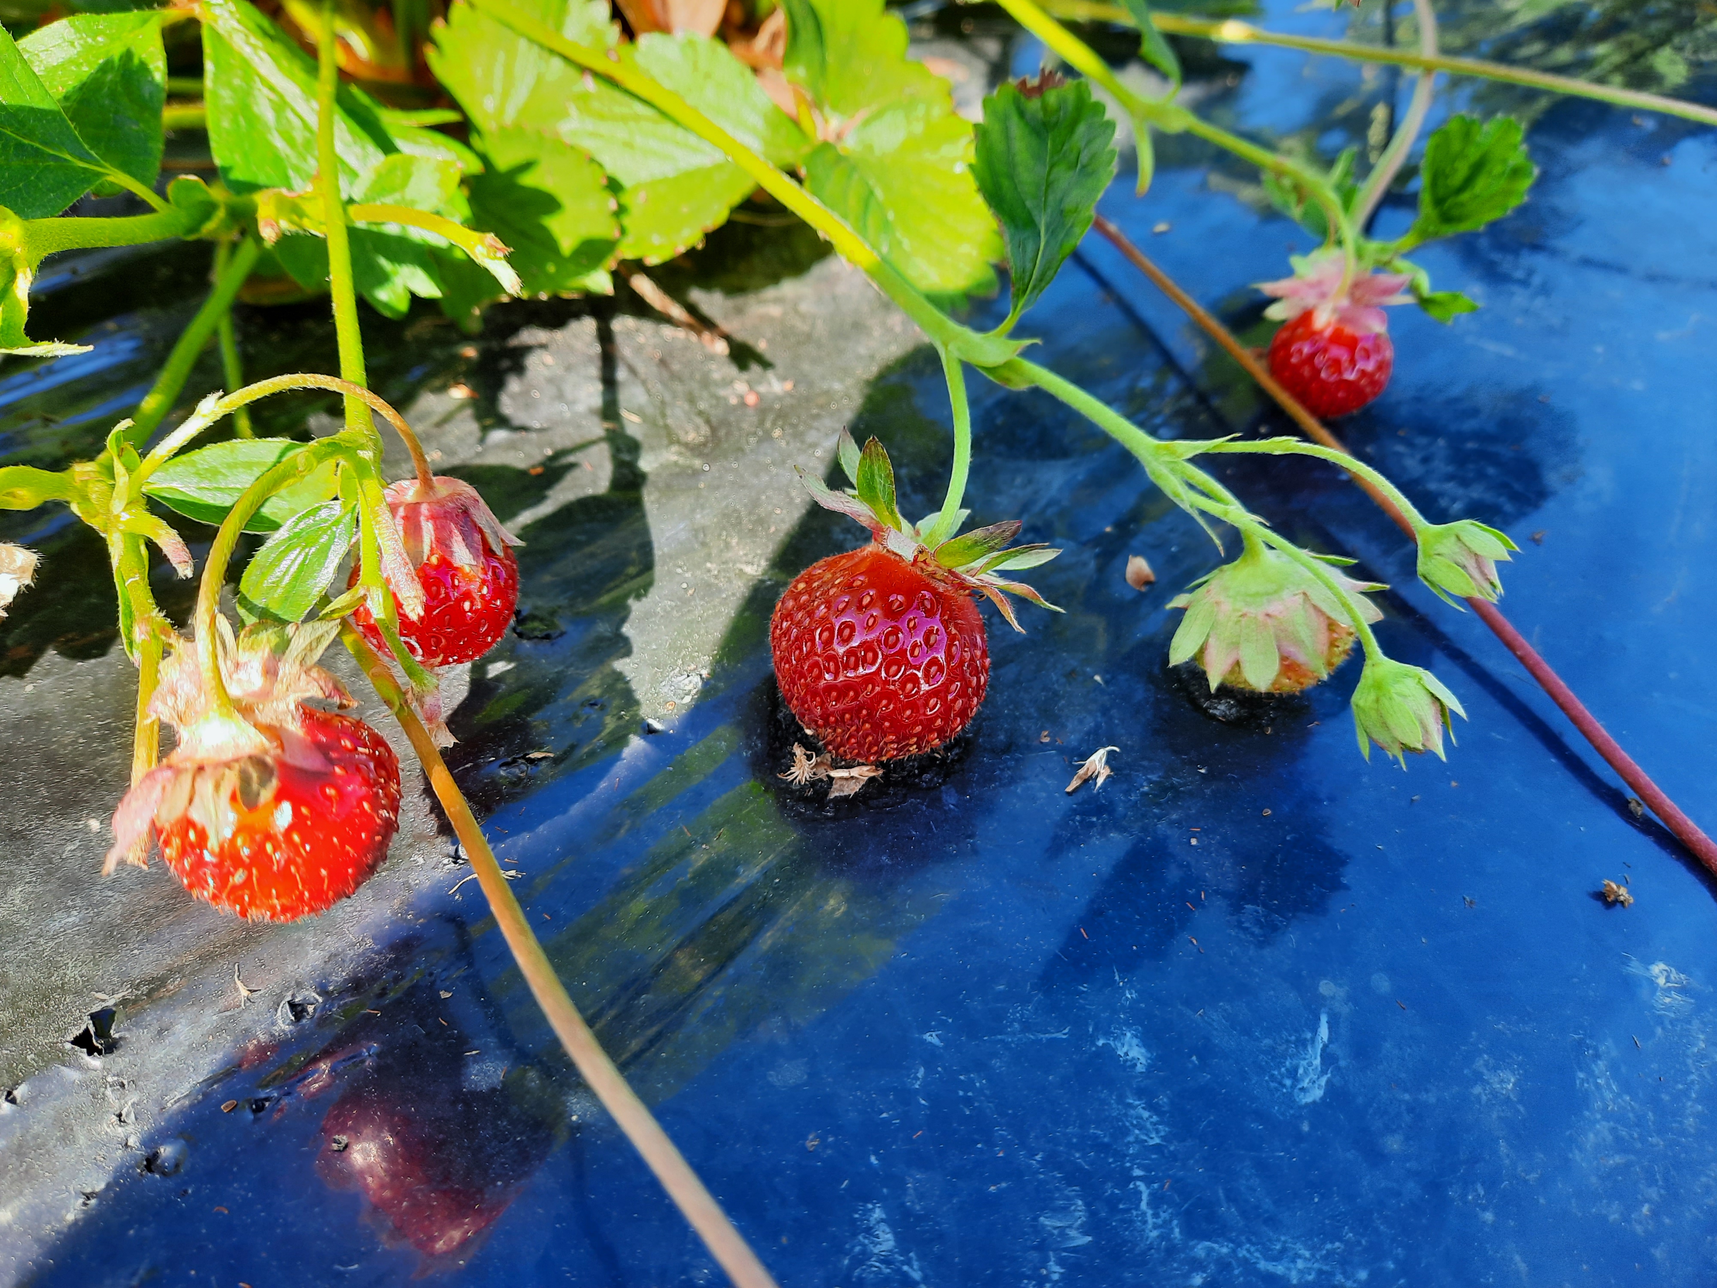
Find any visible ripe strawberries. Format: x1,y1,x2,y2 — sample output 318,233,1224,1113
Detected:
1263,302,1392,416
126,717,395,911
354,491,506,650
778,560,995,769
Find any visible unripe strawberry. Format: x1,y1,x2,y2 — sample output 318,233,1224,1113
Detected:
1195,557,1338,684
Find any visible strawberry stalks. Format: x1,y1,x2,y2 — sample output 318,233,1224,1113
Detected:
321,375,450,511
1164,448,1282,590
1314,176,1369,329
189,472,294,752
893,348,983,590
